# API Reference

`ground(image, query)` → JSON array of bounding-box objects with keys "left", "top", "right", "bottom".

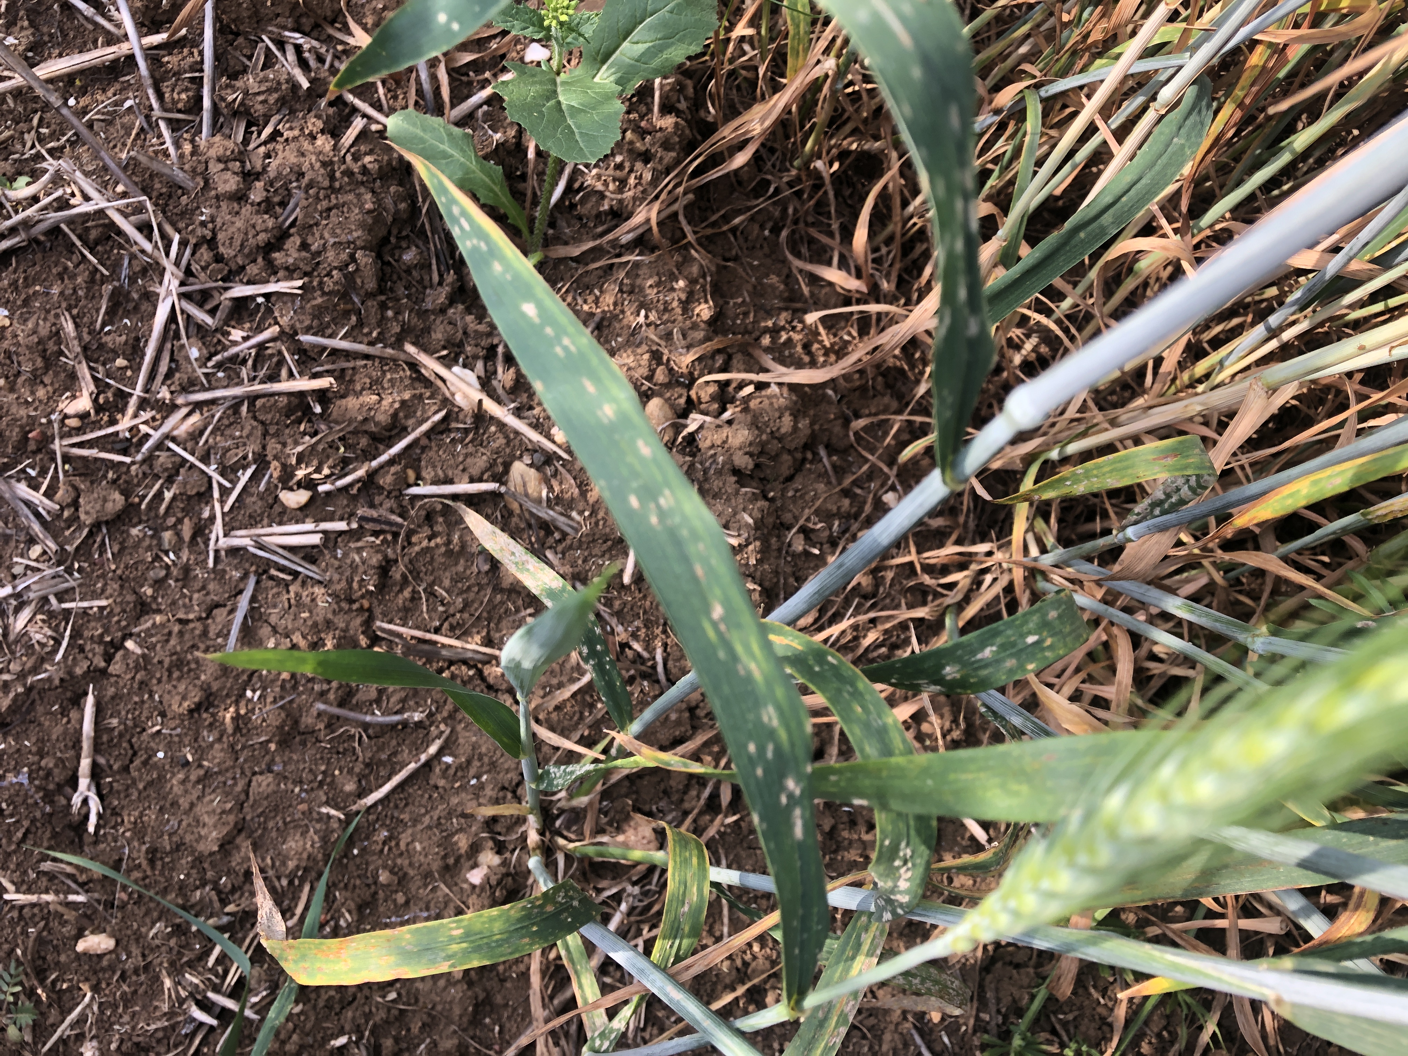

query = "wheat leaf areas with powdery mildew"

[
  {"left": 868, "top": 825, "right": 944, "bottom": 909},
  {"left": 575, "top": 622, "right": 637, "bottom": 701},
  {"left": 881, "top": 571, "right": 1101, "bottom": 697},
  {"left": 445, "top": 866, "right": 623, "bottom": 969},
  {"left": 794, "top": 992, "right": 883, "bottom": 1054},
  {"left": 540, "top": 746, "right": 612, "bottom": 800},
  {"left": 581, "top": 1013, "right": 633, "bottom": 1054},
  {"left": 424, "top": 168, "right": 839, "bottom": 843},
  {"left": 920, "top": 39, "right": 1017, "bottom": 371},
  {"left": 430, "top": 1, "right": 478, "bottom": 45}
]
